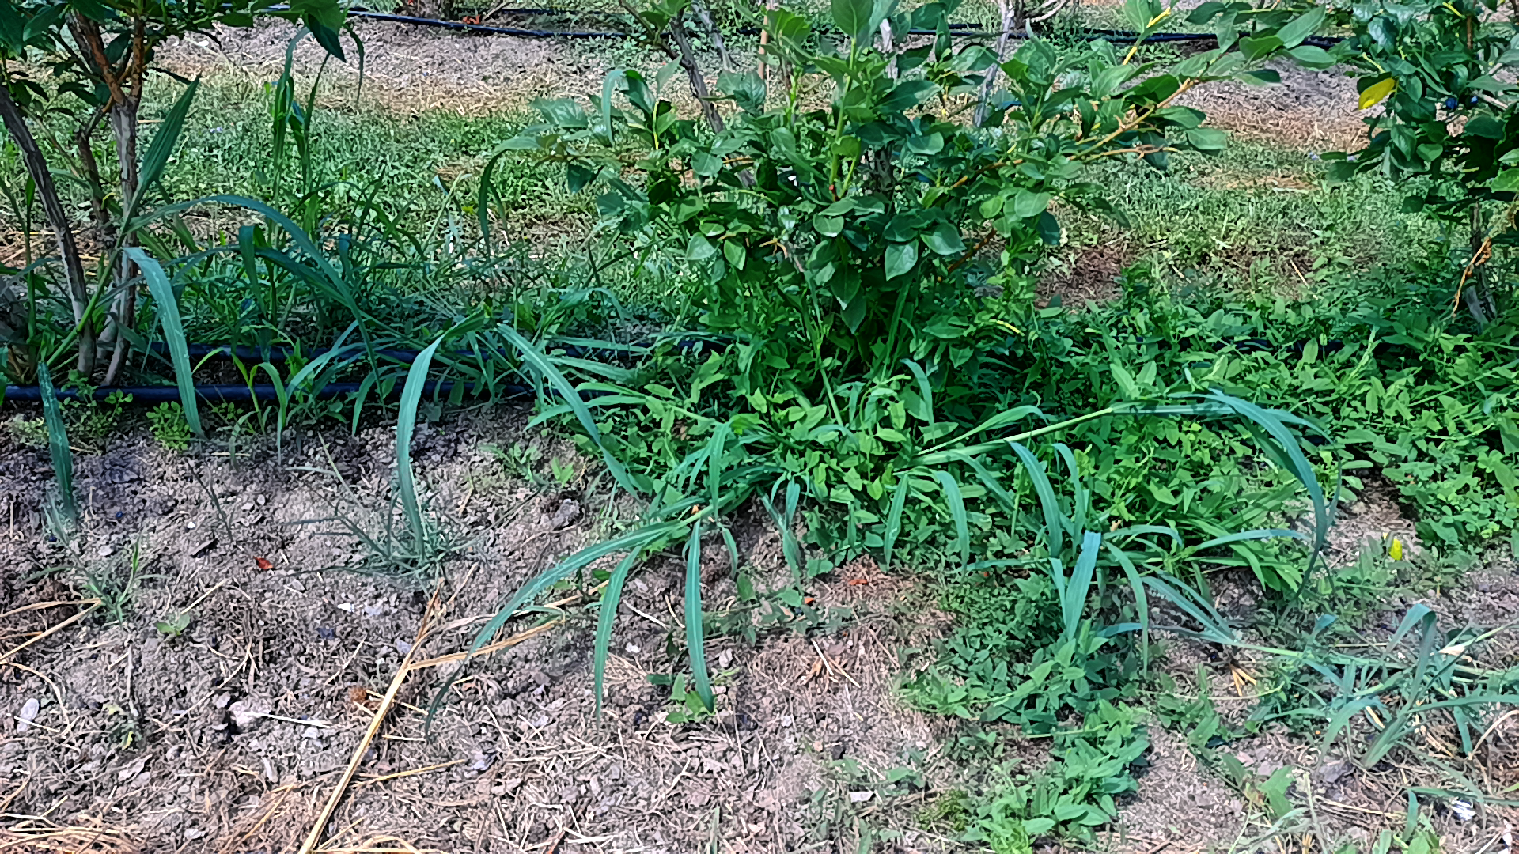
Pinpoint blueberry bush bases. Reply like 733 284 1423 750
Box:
655 28 1069 483
4 184 199 475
